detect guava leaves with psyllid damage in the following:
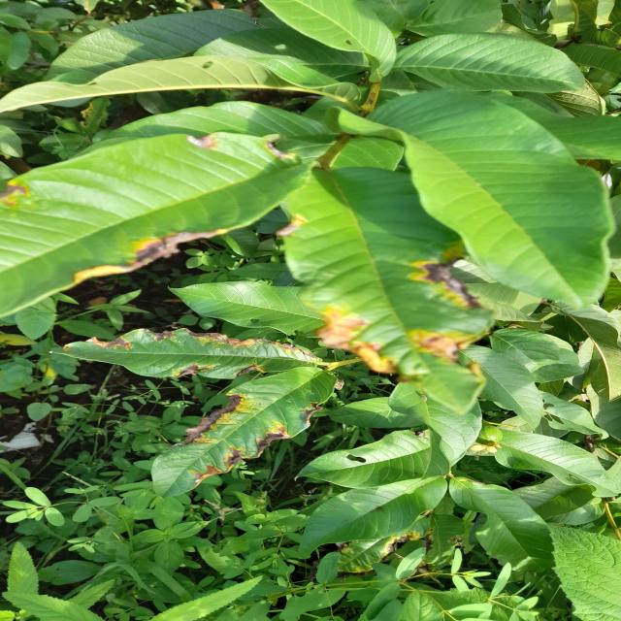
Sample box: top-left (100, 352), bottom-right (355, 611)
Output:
top-left (274, 136), bottom-right (488, 415)
top-left (42, 308), bottom-right (335, 379)
top-left (152, 346), bottom-right (351, 502)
